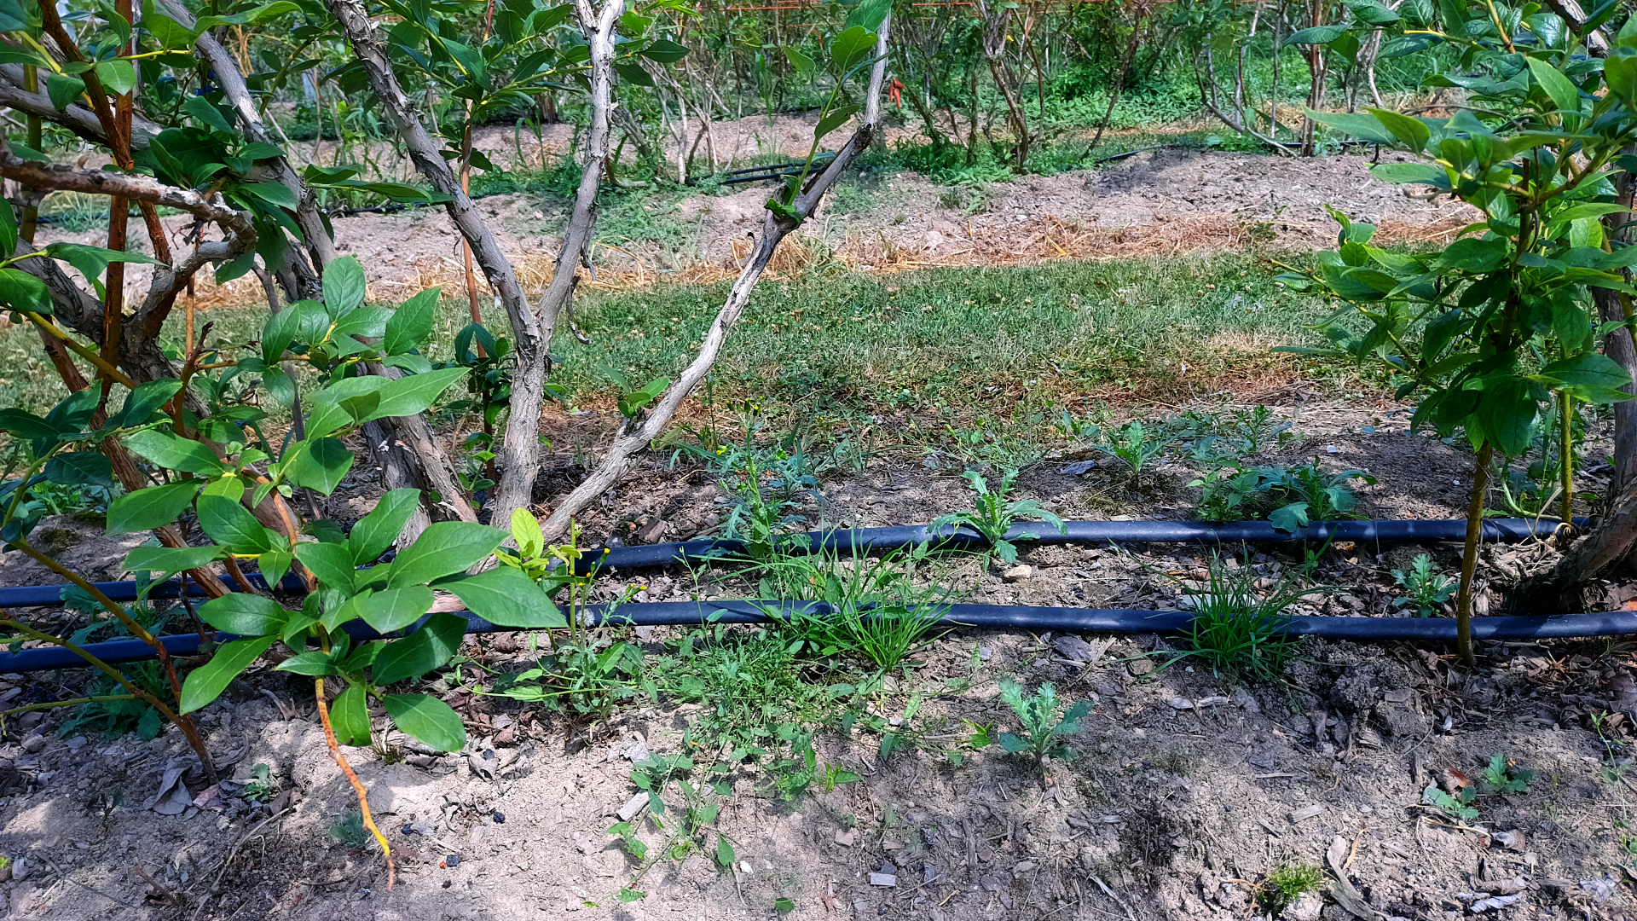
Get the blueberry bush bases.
[27,379,572,773]
[620,135,731,209]
[1195,93,1362,184]
[911,107,1099,207]
[1462,372,1636,672]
